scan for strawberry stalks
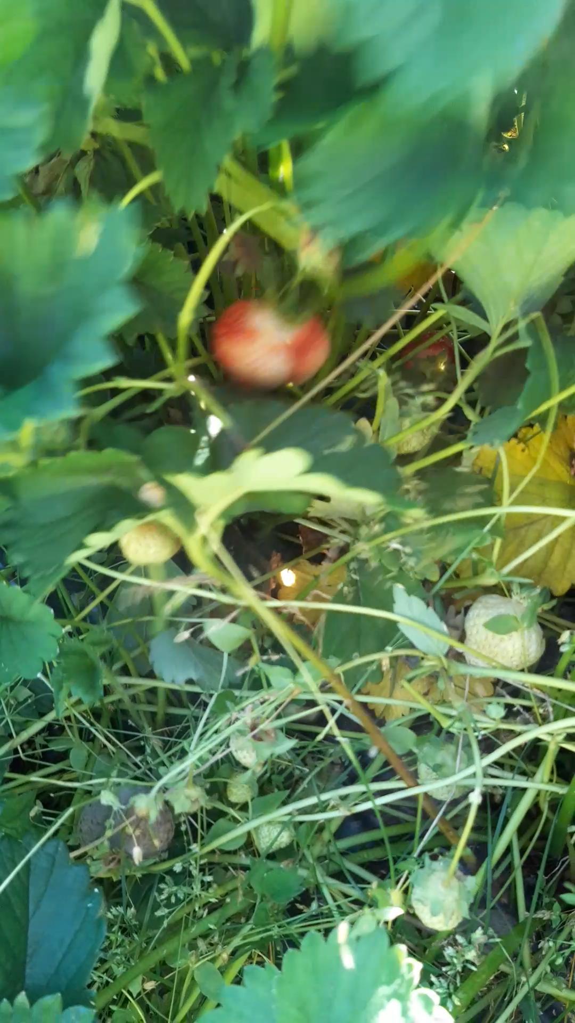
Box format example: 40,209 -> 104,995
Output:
448,839 -> 473,891
264,246 -> 307,320
240,688 -> 300,745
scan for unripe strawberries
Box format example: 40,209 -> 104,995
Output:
208,288 -> 329,394
412,738 -> 486,803
120,498 -> 181,566
224,708 -> 276,772
460,582 -> 553,682
414,862 -> 479,930
249,808 -> 300,864
105,793 -> 176,858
